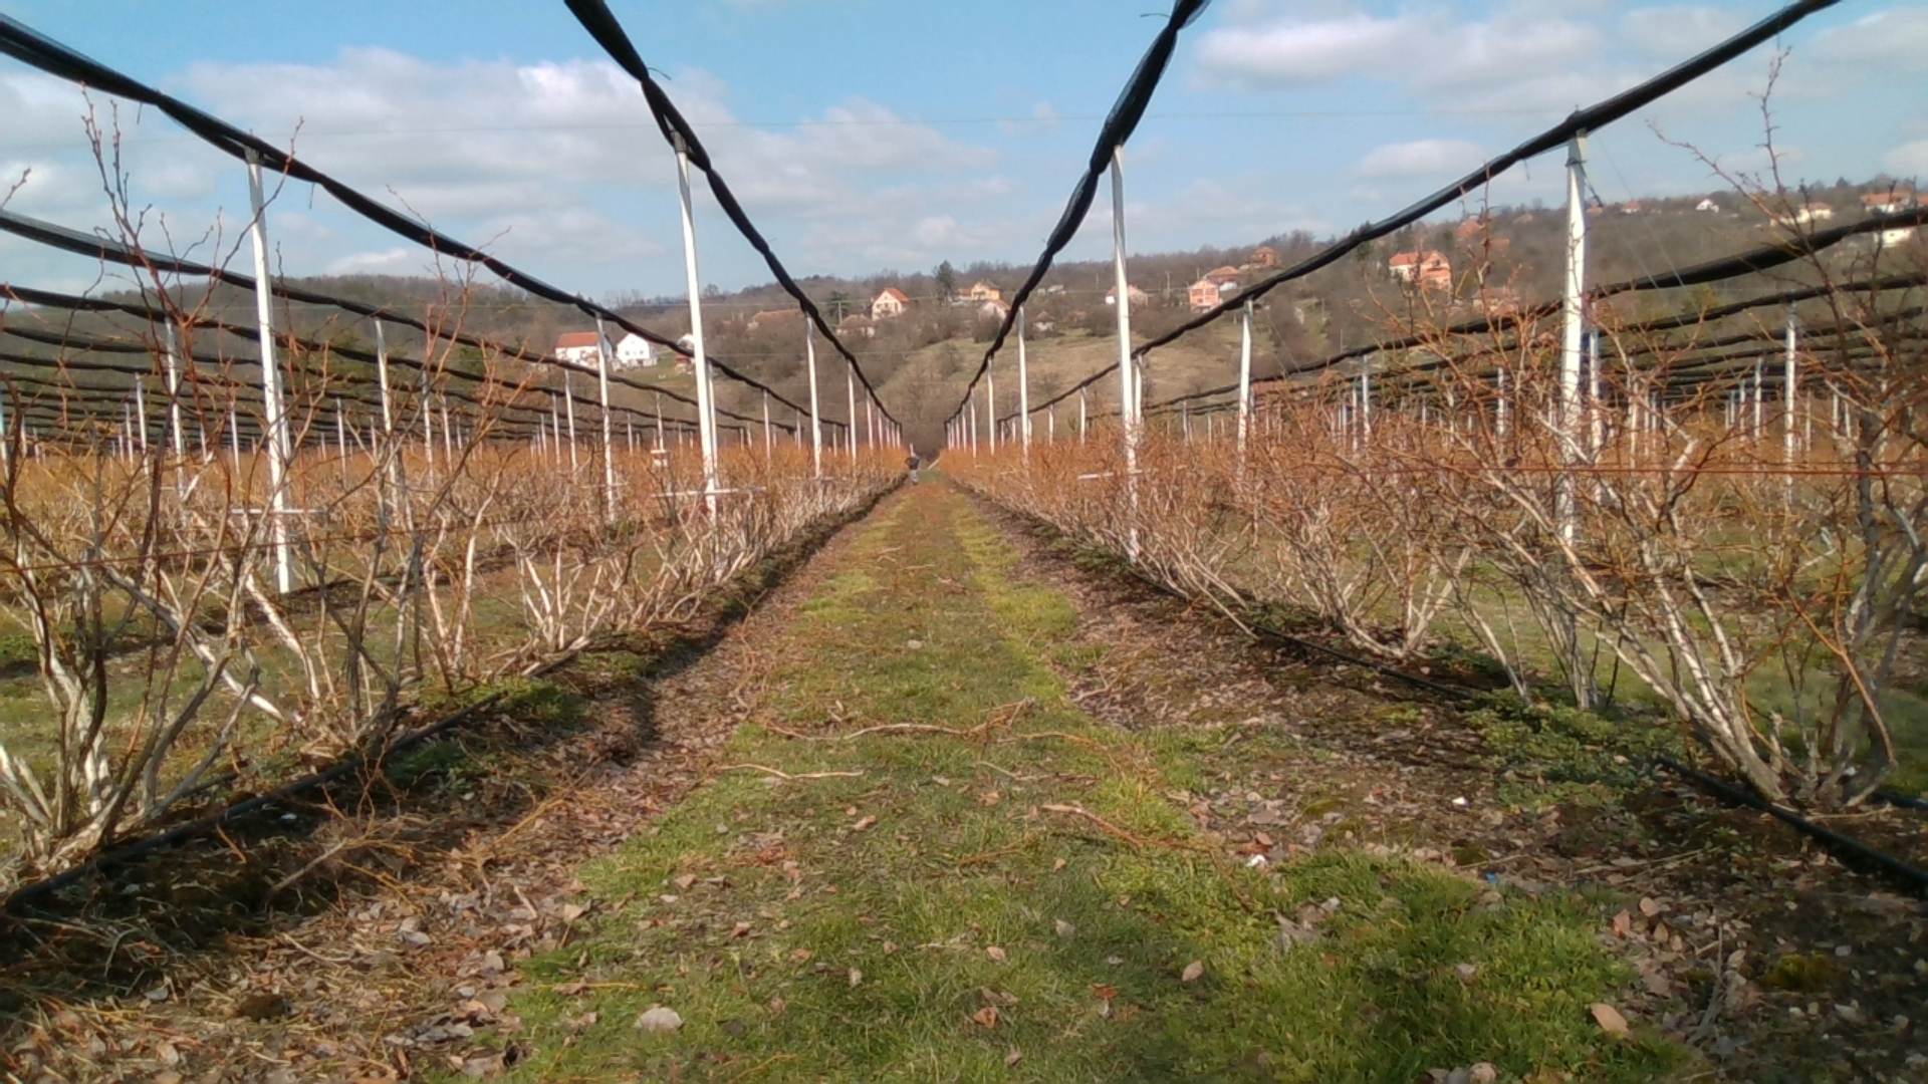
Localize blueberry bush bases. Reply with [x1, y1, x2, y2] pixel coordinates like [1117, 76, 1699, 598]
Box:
[1525, 649, 1640, 740]
[249, 667, 413, 793]
[397, 621, 521, 727]
[1339, 605, 1450, 677]
[11, 752, 188, 903]
[1234, 562, 1306, 621]
[505, 599, 609, 680]
[1712, 690, 1896, 842]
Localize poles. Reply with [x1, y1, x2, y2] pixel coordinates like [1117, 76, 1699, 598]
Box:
[673, 140, 730, 589]
[1554, 134, 1591, 581]
[1110, 143, 1147, 570]
[249, 157, 299, 600]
